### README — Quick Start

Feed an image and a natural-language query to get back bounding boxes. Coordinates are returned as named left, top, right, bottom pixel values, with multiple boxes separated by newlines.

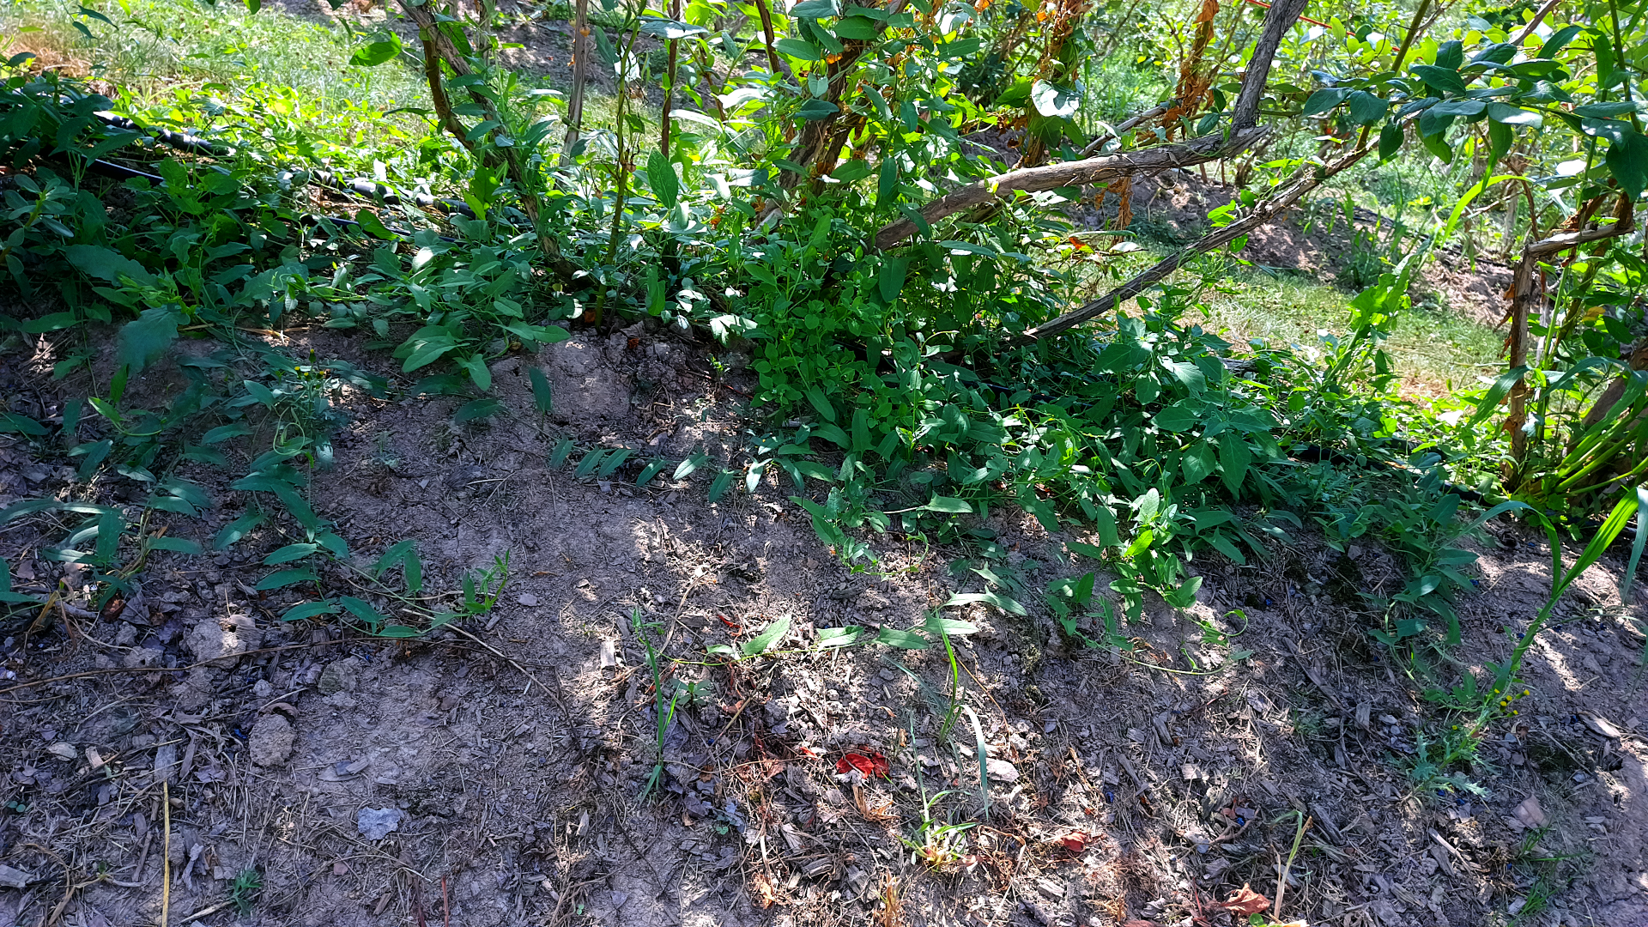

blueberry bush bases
left=1457, top=337, right=1639, bottom=579
left=560, top=147, right=1106, bottom=481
